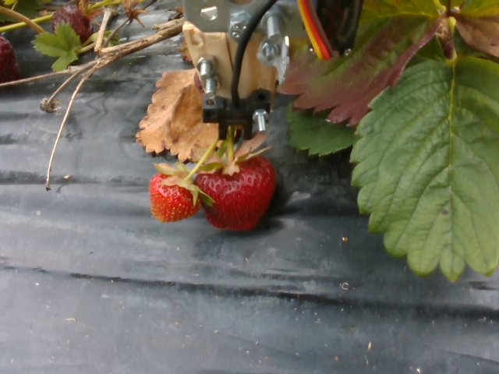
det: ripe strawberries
[204,154,277,228]
[149,165,201,224]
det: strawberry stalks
[177,130,225,189]
[224,122,248,179]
